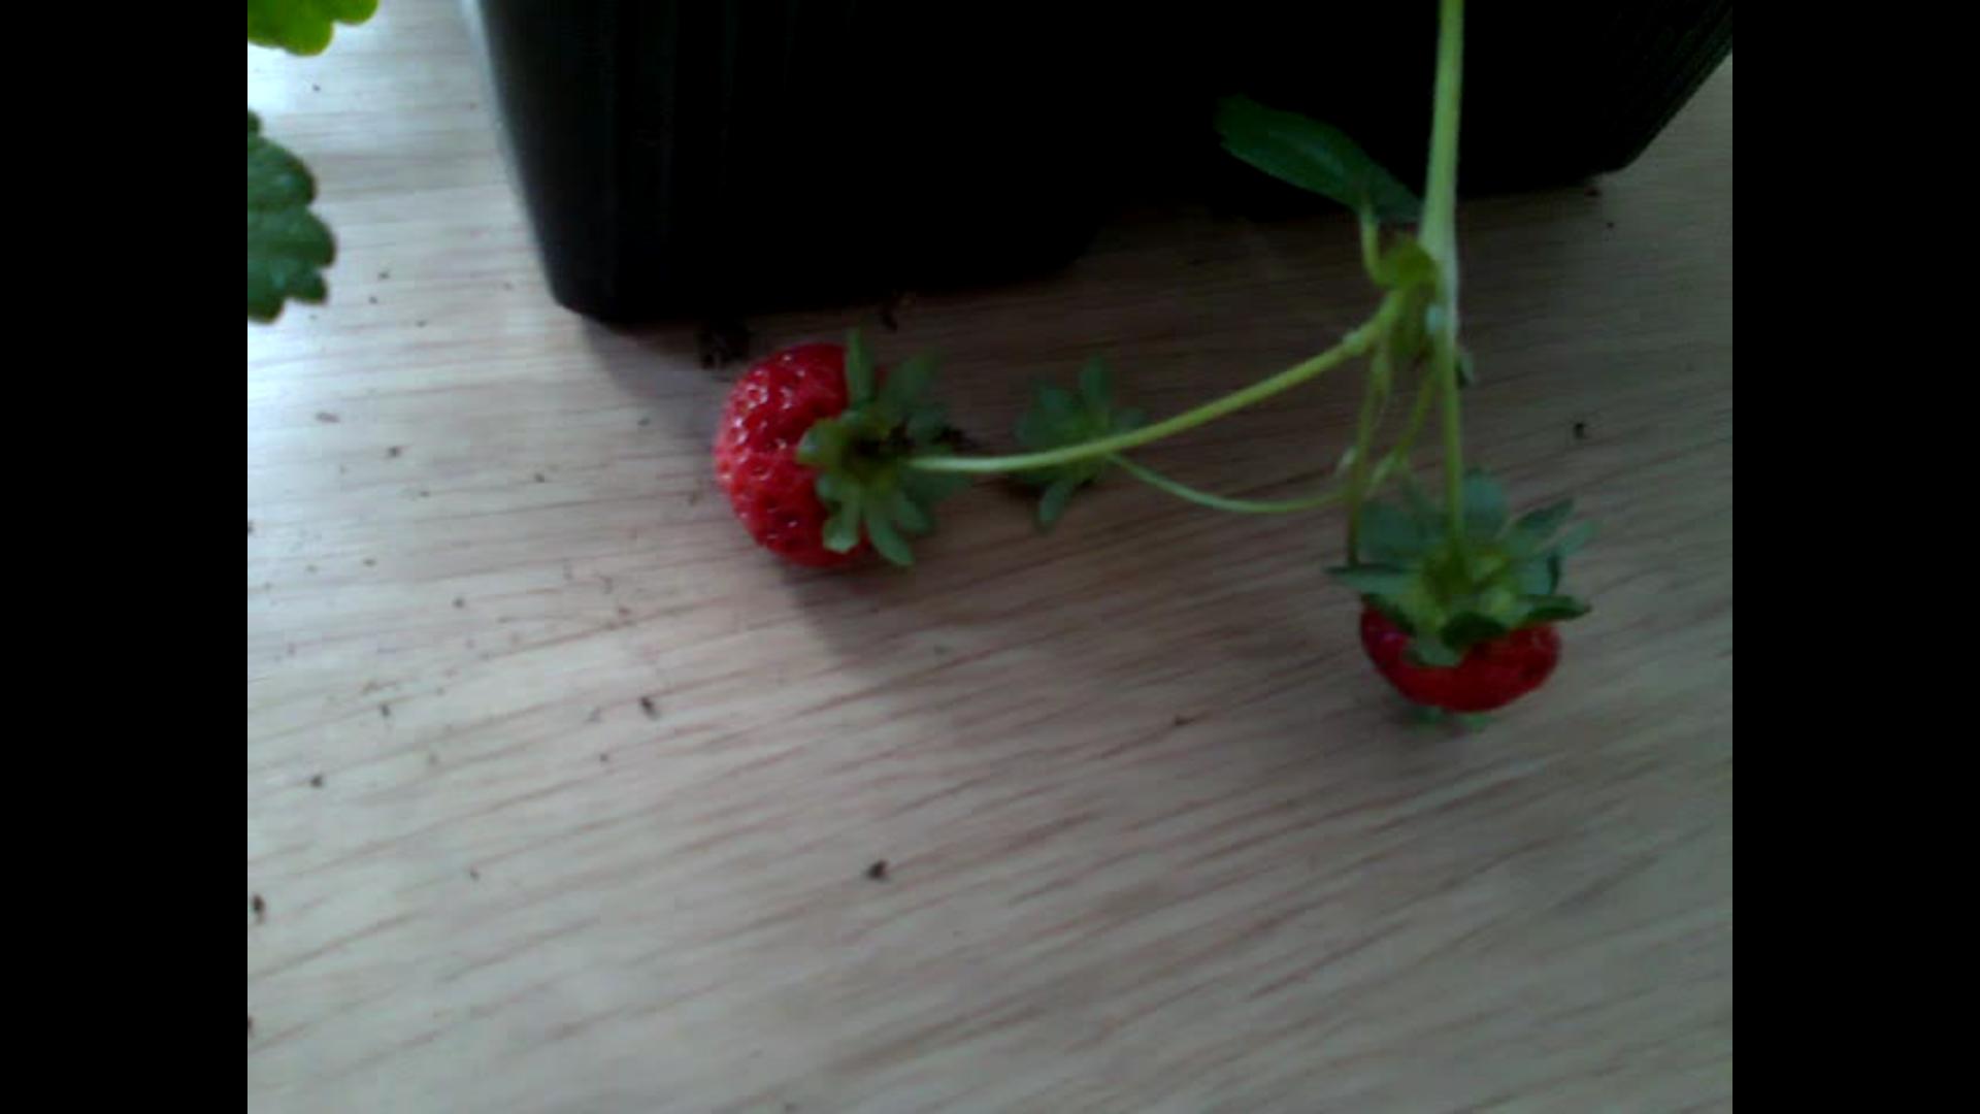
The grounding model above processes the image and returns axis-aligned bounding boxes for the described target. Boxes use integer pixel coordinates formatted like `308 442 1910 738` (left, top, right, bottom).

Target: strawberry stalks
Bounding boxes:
1068 395 1246 516
1417 345 1533 604
822 391 1068 487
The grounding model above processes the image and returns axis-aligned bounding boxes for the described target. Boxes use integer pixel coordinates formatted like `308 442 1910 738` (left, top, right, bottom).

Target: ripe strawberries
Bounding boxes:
1346 516 1642 700
715 307 948 613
